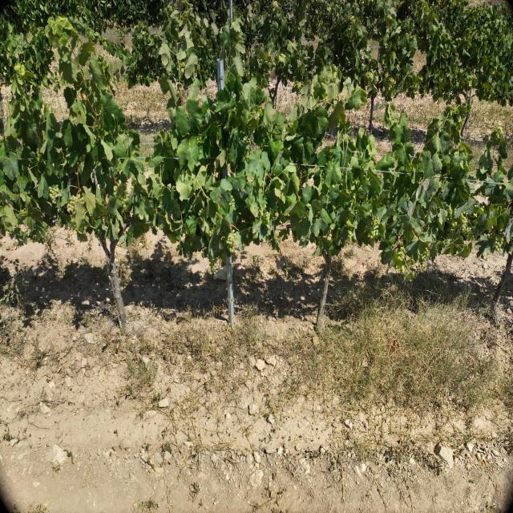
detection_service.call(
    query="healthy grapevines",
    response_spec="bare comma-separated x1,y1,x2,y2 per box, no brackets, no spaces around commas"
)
228,97,416,349
0,71,234,351
411,104,513,339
